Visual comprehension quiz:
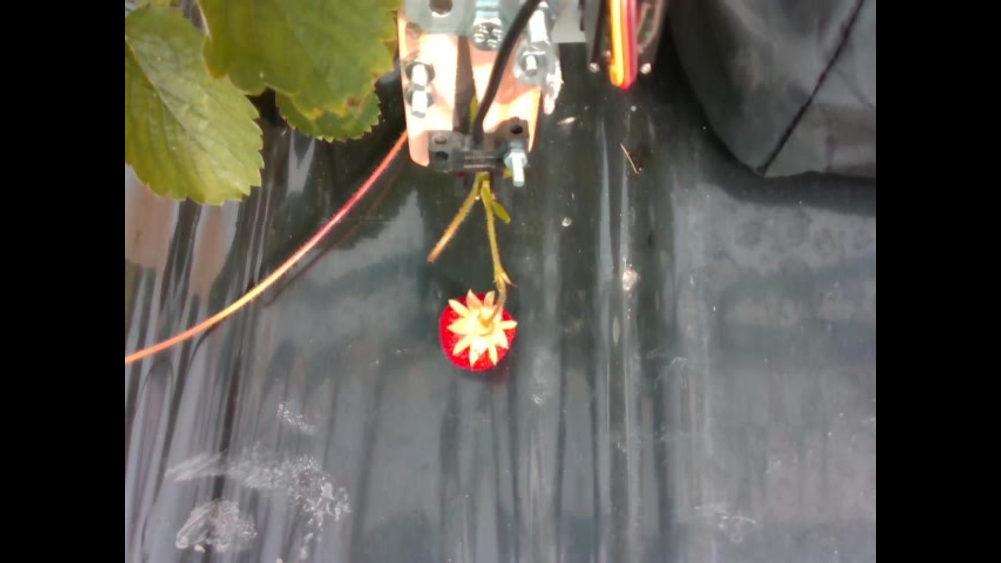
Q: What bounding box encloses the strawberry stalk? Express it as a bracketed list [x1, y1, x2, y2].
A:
[477, 209, 509, 332]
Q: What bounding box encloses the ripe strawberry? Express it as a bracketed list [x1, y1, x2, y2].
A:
[432, 286, 524, 376]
